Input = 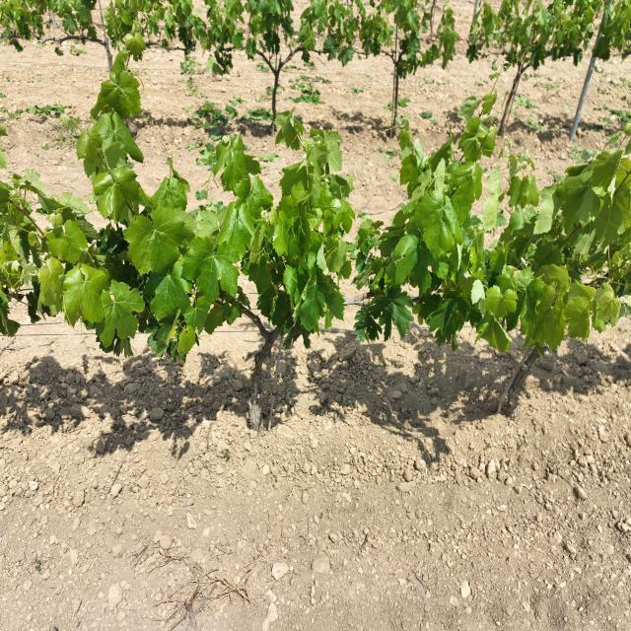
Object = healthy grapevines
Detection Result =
[40,85,370,447]
[369,99,631,429]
